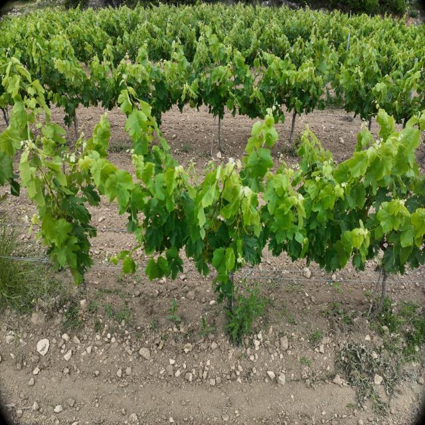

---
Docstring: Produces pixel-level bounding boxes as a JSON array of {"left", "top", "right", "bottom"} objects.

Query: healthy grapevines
[
  {"left": 315, "top": 117, "right": 425, "bottom": 329},
  {"left": 15, "top": 104, "right": 316, "bottom": 330}
]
